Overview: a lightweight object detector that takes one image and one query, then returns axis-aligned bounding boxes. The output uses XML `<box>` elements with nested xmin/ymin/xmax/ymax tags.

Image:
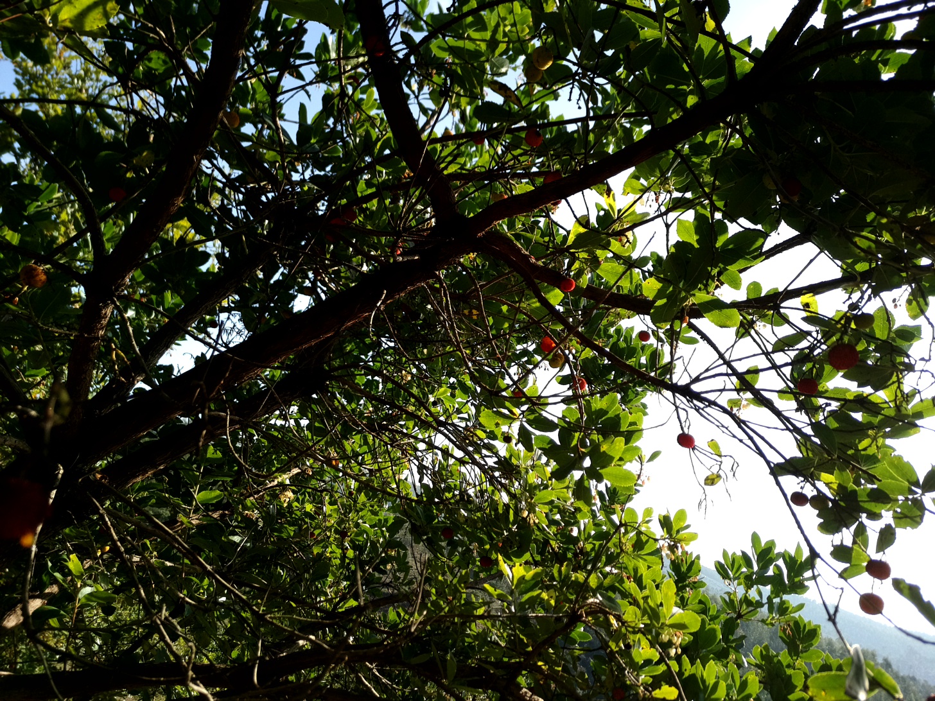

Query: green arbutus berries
<box><xmin>809</xmin><ymin>492</ymin><xmax>830</xmax><ymax>512</ymax></box>
<box><xmin>853</xmin><ymin>311</ymin><xmax>875</xmax><ymax>328</ymax></box>
<box><xmin>524</xmin><ymin>63</ymin><xmax>543</xmax><ymax>82</ymax></box>
<box><xmin>131</xmin><ymin>148</ymin><xmax>157</xmax><ymax>167</ymax></box>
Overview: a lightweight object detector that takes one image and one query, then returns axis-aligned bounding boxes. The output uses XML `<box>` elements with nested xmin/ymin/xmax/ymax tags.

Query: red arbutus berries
<box><xmin>560</xmin><ymin>278</ymin><xmax>576</xmax><ymax>292</ymax></box>
<box><xmin>525</xmin><ymin>130</ymin><xmax>542</xmax><ymax>146</ymax></box>
<box><xmin>572</xmin><ymin>378</ymin><xmax>588</xmax><ymax>391</ymax></box>
<box><xmin>108</xmin><ymin>188</ymin><xmax>129</xmax><ymax>204</ymax></box>
<box><xmin>494</xmin><ymin>193</ymin><xmax>508</xmax><ymax>202</ymax></box>
<box><xmin>865</xmin><ymin>558</ymin><xmax>891</xmax><ymax>581</ymax></box>
<box><xmin>638</xmin><ymin>329</ymin><xmax>651</xmax><ymax>342</ymax></box>
<box><xmin>442</xmin><ymin>527</ymin><xmax>454</xmax><ymax>538</ymax></box>
<box><xmin>860</xmin><ymin>592</ymin><xmax>885</xmax><ymax>615</ymax></box>
<box><xmin>798</xmin><ymin>378</ymin><xmax>818</xmax><ymax>395</ymax></box>
<box><xmin>676</xmin><ymin>432</ymin><xmax>695</xmax><ymax>449</ymax></box>
<box><xmin>480</xmin><ymin>555</ymin><xmax>492</xmax><ymax>567</ymax></box>
<box><xmin>790</xmin><ymin>490</ymin><xmax>809</xmax><ymax>506</ymax></box>
<box><xmin>541</xmin><ymin>170</ymin><xmax>564</xmax><ymax>185</ymax></box>
<box><xmin>473</xmin><ymin>134</ymin><xmax>485</xmax><ymax>145</ymax></box>
<box><xmin>511</xmin><ymin>390</ymin><xmax>523</xmax><ymax>398</ymax></box>
<box><xmin>540</xmin><ymin>335</ymin><xmax>556</xmax><ymax>352</ymax></box>
<box><xmin>828</xmin><ymin>344</ymin><xmax>860</xmax><ymax>369</ymax></box>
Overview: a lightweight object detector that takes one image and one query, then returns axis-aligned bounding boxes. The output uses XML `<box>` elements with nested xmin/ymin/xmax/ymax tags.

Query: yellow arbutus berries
<box><xmin>531</xmin><ymin>45</ymin><xmax>554</xmax><ymax>70</ymax></box>
<box><xmin>221</xmin><ymin>110</ymin><xmax>240</xmax><ymax>129</ymax></box>
<box><xmin>16</xmin><ymin>263</ymin><xmax>49</xmax><ymax>288</ymax></box>
<box><xmin>548</xmin><ymin>357</ymin><xmax>561</xmax><ymax>368</ymax></box>
<box><xmin>552</xmin><ymin>351</ymin><xmax>564</xmax><ymax>363</ymax></box>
